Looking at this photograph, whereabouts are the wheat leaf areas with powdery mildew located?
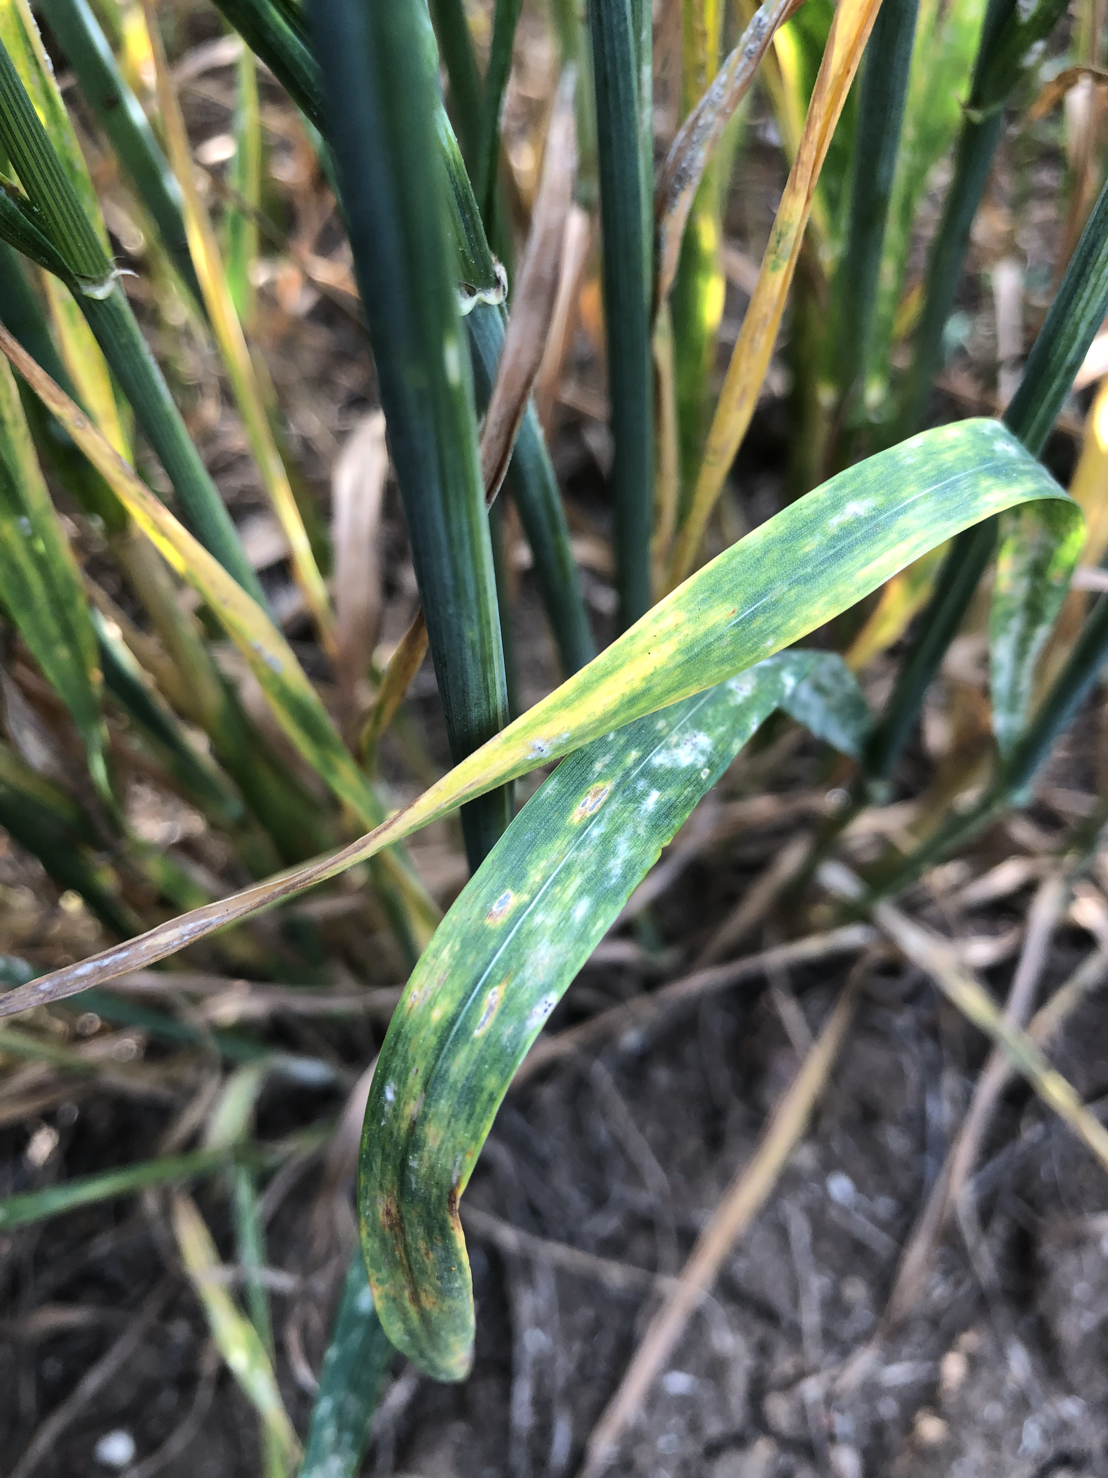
[263,1277,411,1478]
[352,644,957,1375]
[503,730,568,777]
[655,0,786,260]
[945,410,1044,496]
